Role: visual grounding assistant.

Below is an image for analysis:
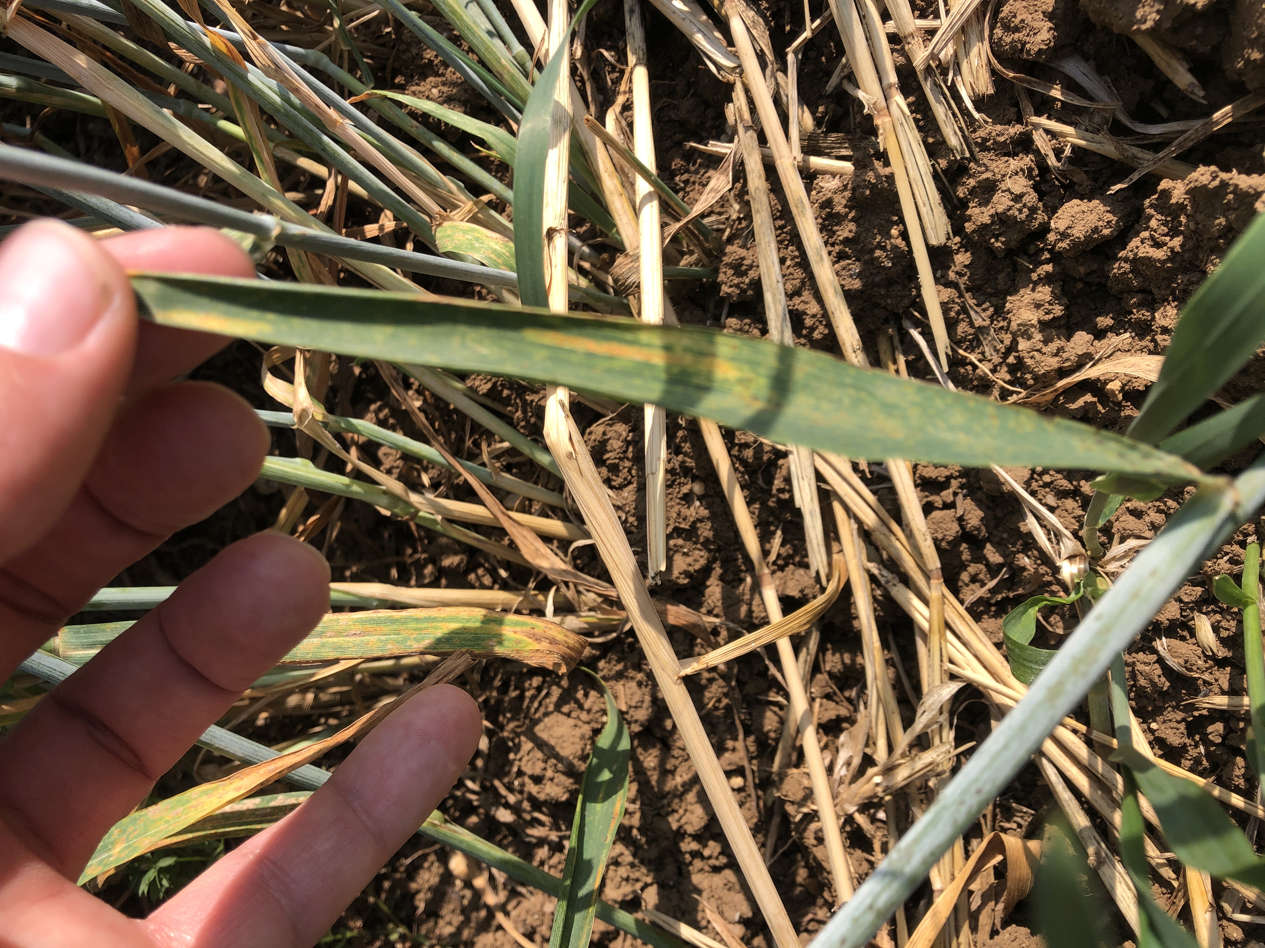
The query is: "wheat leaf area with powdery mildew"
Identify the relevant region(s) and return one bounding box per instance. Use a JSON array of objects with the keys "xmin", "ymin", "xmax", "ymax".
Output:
[{"xmin": 293, "ymin": 596, "xmax": 503, "ymax": 664}]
